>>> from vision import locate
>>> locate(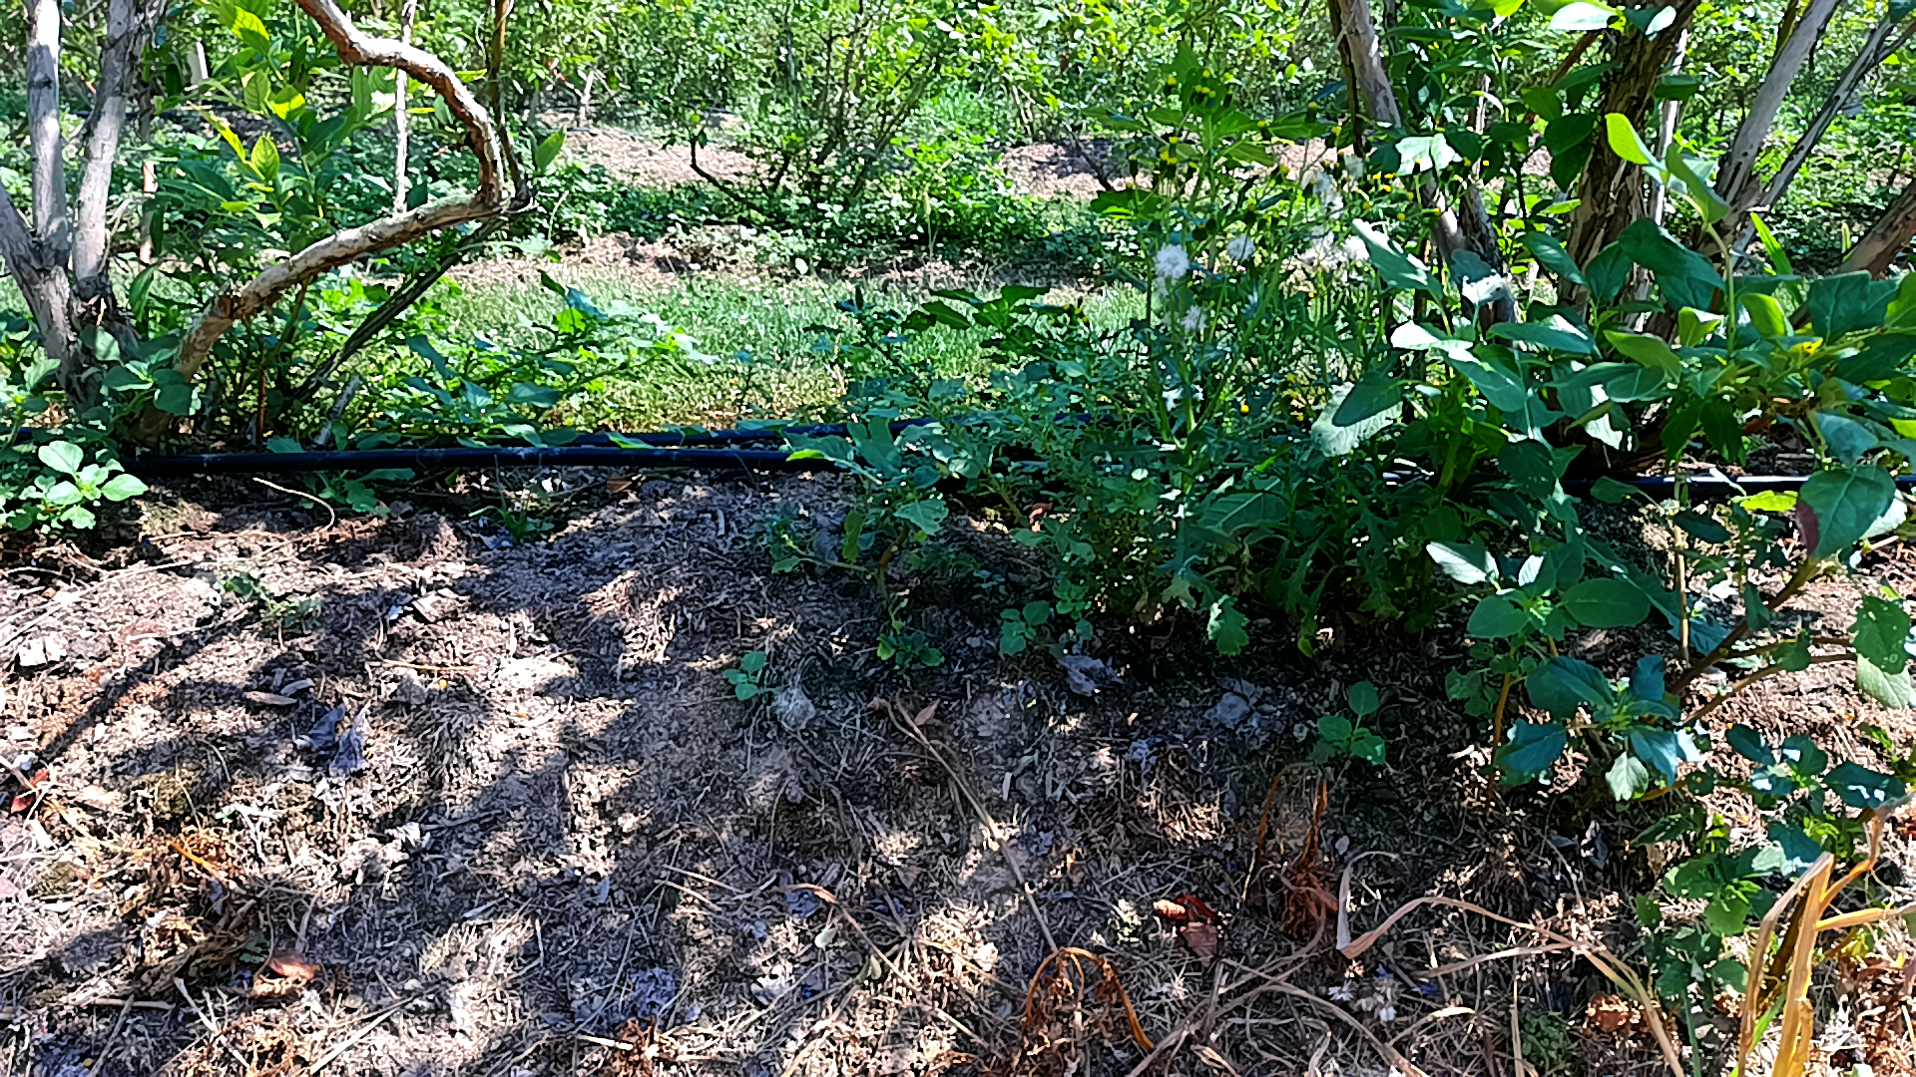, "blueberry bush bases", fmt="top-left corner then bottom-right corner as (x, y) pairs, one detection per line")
(1383, 166), (1815, 605)
(2, 162), (418, 531)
